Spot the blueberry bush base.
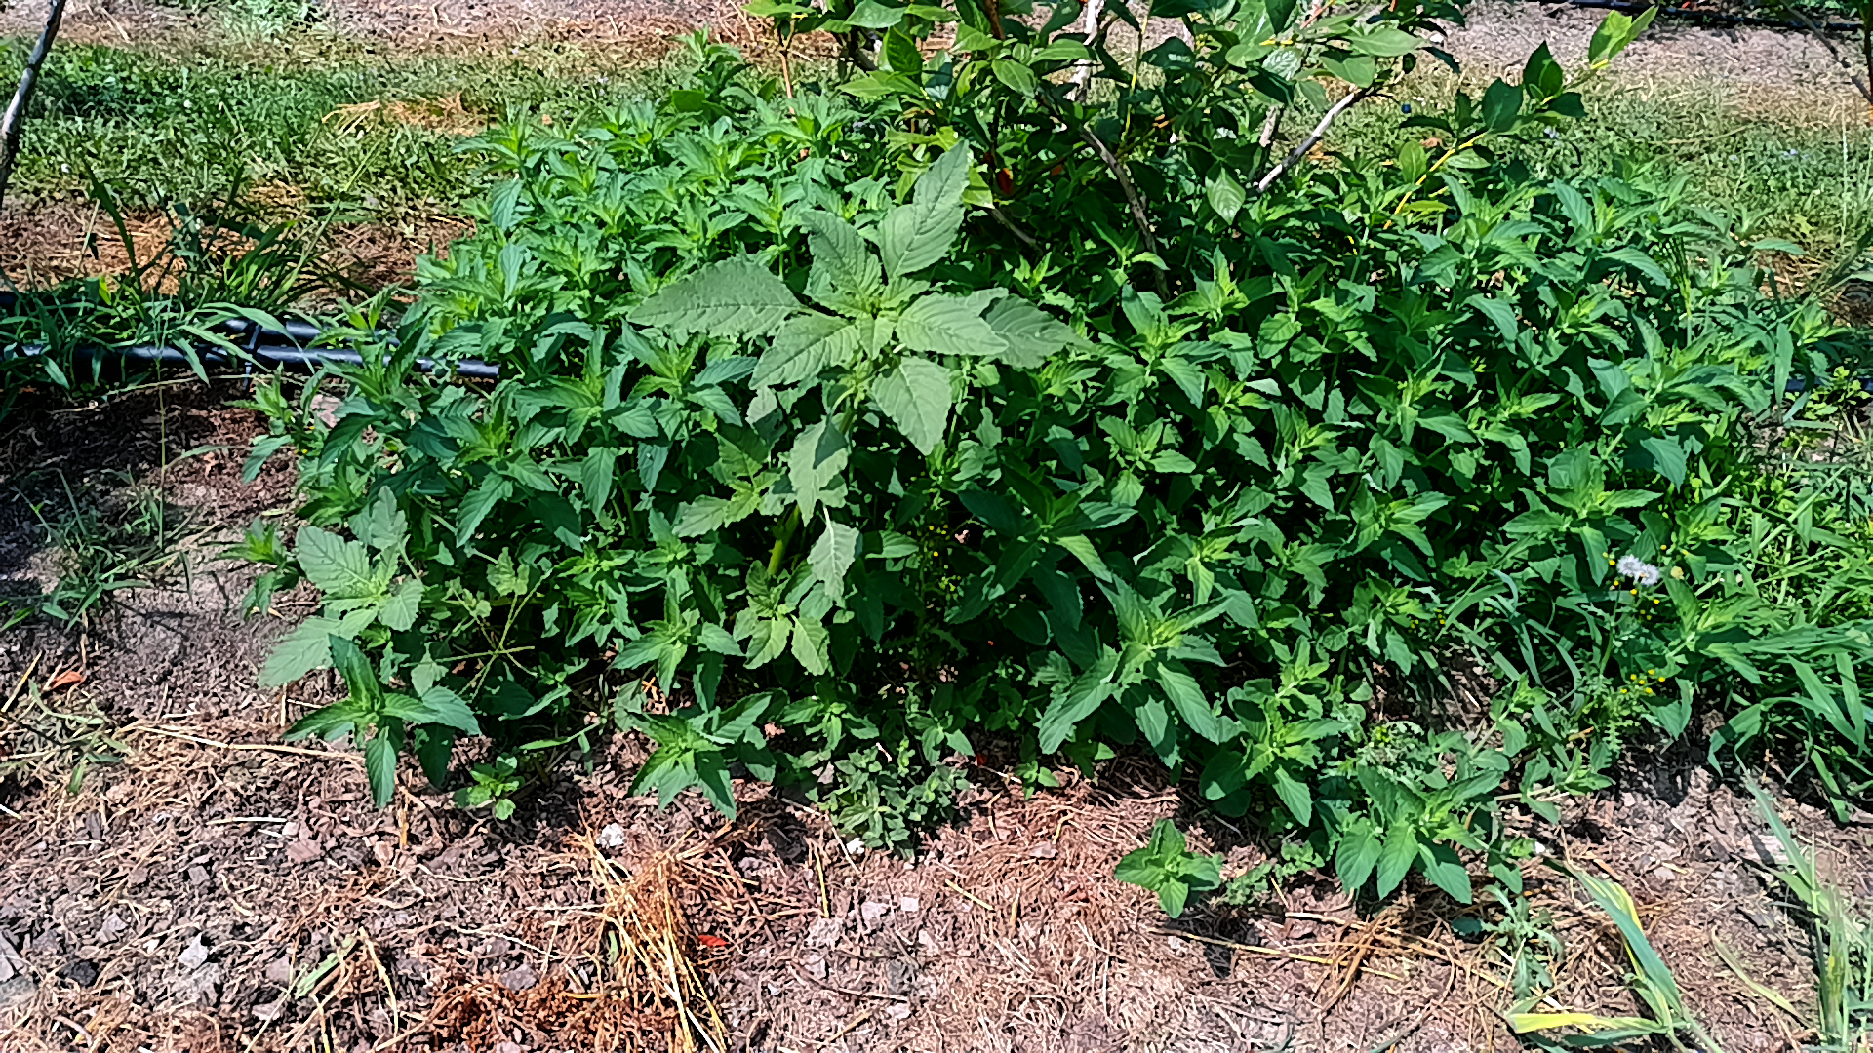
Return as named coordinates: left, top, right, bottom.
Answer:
left=940, top=80, right=1314, bottom=332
